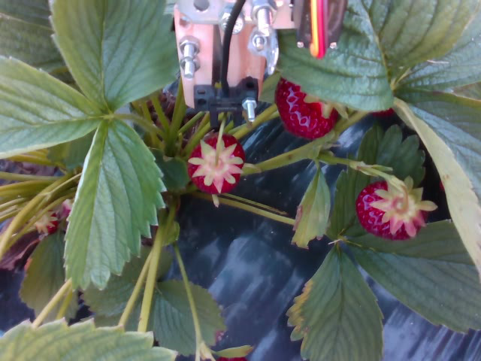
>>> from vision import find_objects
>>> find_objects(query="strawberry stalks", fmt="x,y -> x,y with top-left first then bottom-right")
212,126 -> 228,169
377,163 -> 412,205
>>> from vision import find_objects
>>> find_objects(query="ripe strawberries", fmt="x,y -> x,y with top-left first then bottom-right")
356,176 -> 435,241
270,72 -> 349,137
187,134 -> 247,196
